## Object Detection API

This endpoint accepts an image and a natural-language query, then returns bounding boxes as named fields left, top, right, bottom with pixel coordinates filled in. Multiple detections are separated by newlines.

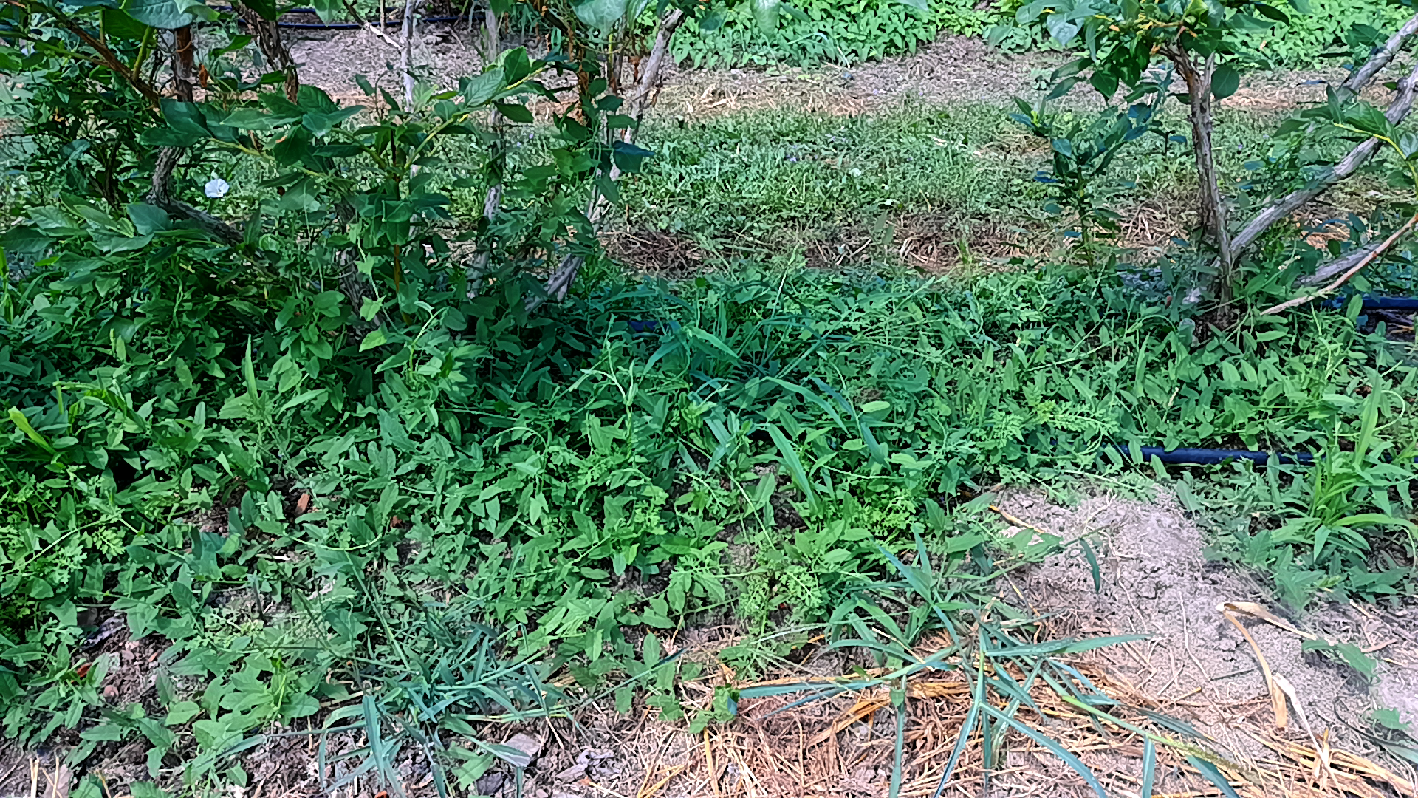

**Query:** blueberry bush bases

left=35, top=127, right=650, bottom=441
left=1123, top=154, right=1402, bottom=417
